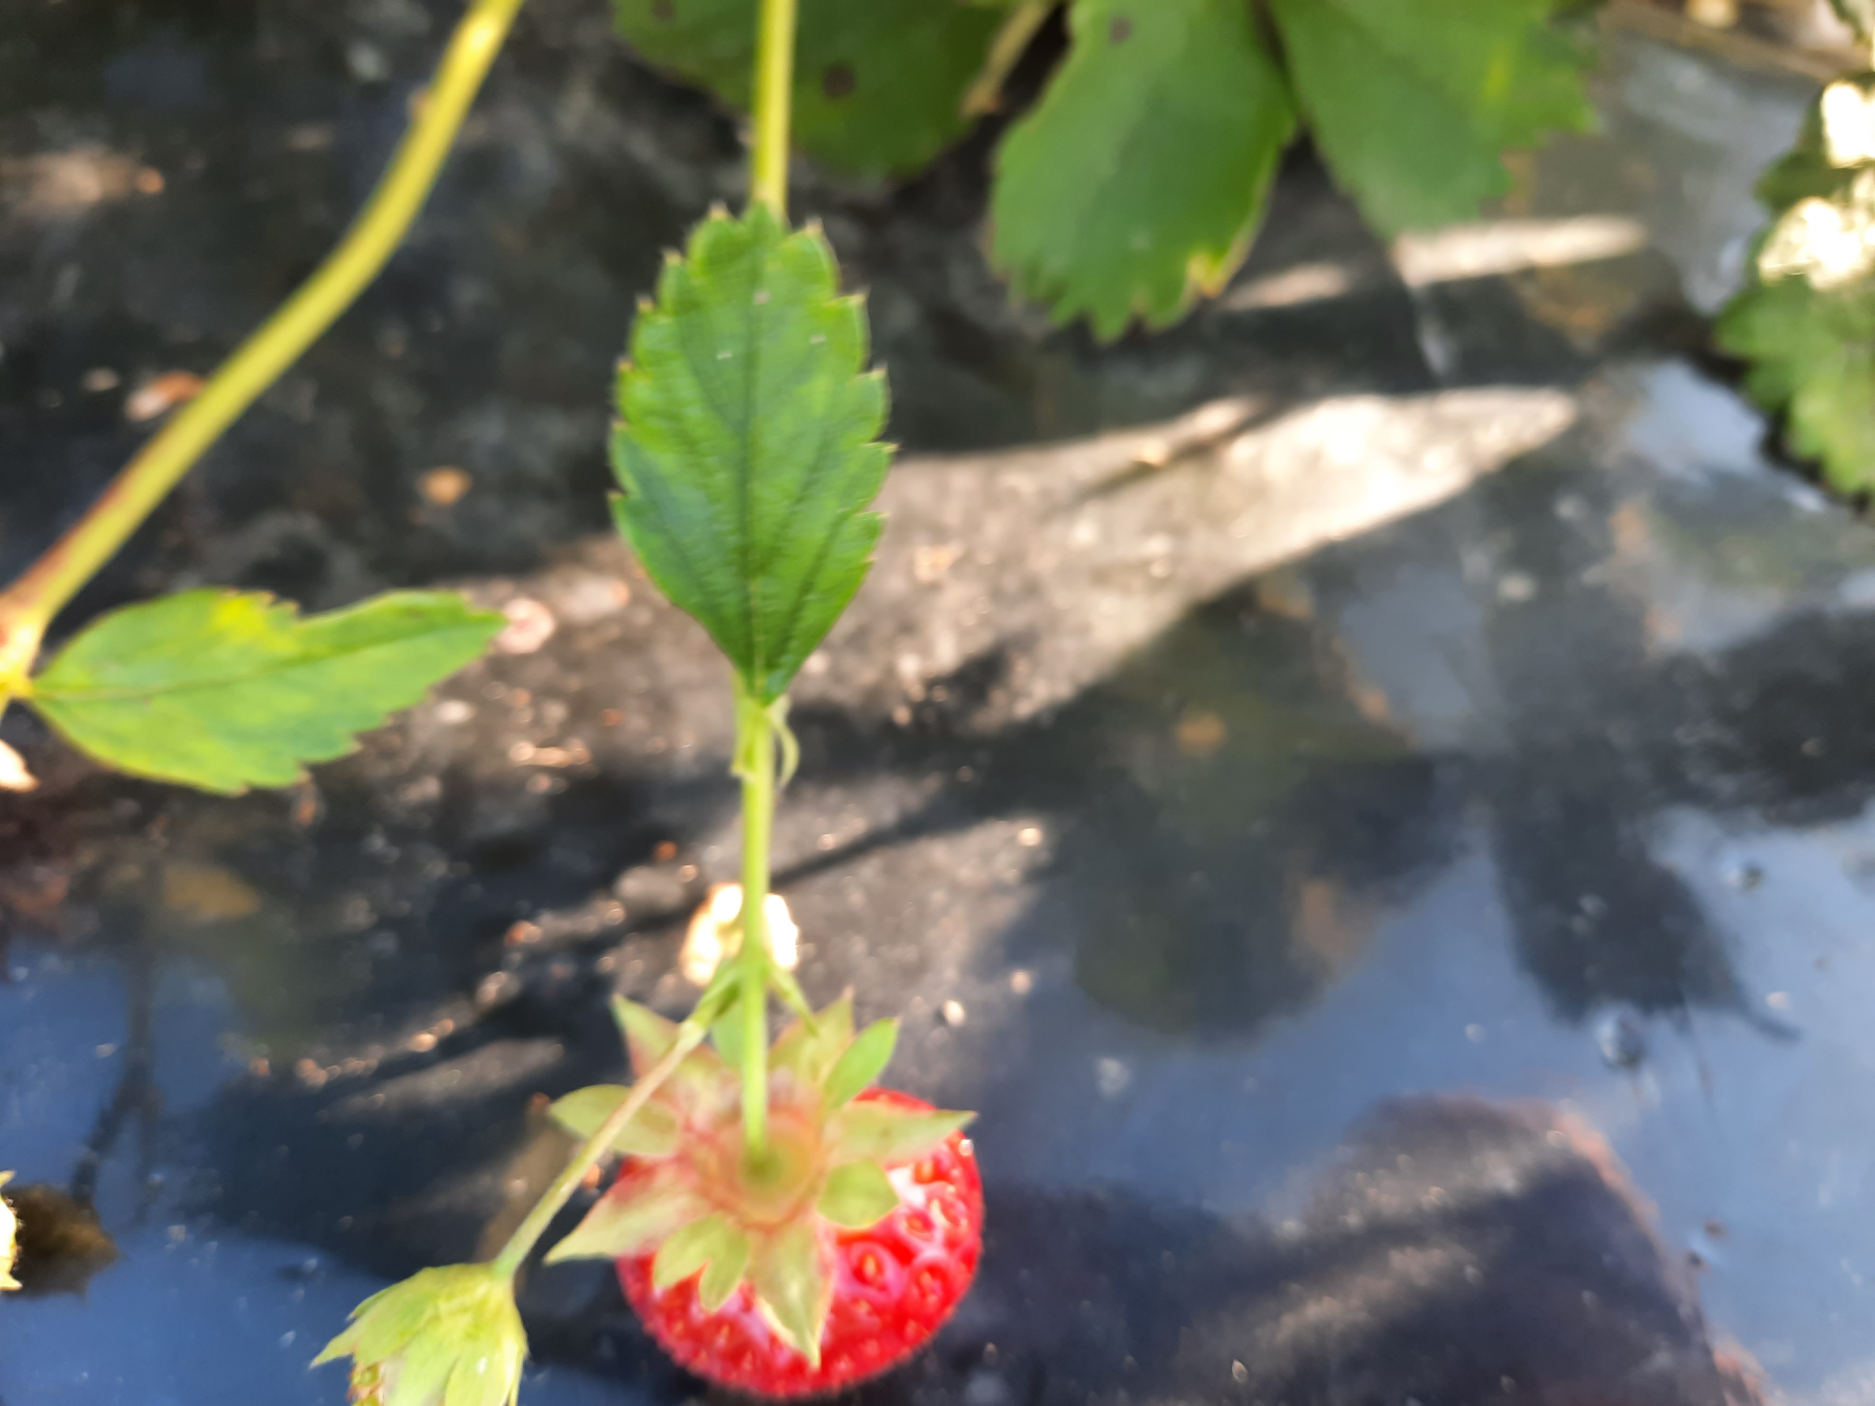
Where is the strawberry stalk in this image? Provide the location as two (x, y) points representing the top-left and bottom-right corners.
(720, 700), (784, 1200)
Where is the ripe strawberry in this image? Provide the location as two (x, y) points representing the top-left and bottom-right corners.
(625, 1073), (976, 1363)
